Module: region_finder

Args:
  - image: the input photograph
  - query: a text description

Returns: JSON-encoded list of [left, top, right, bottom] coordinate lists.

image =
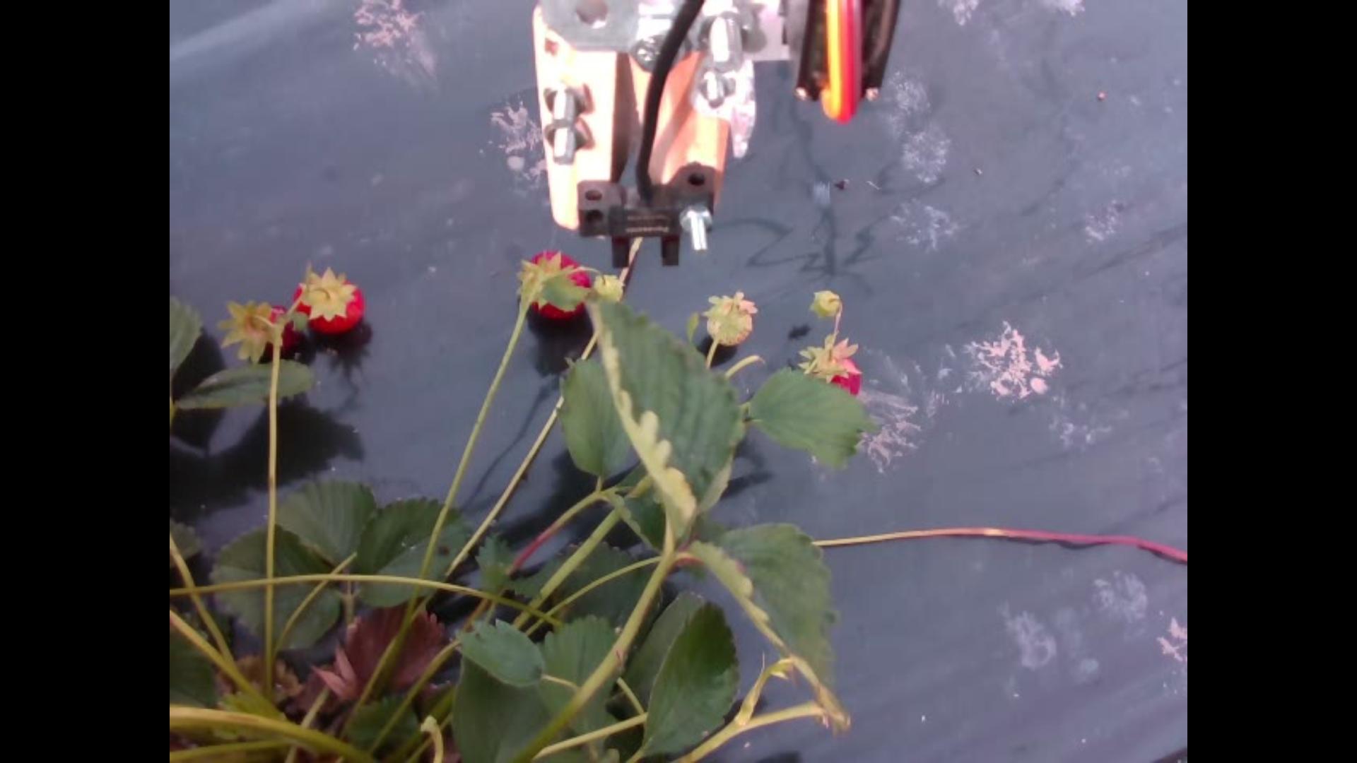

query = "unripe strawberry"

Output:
[[706, 287, 756, 350]]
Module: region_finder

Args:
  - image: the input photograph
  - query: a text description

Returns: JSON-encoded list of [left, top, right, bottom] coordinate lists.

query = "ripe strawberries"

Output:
[[299, 271, 368, 332], [518, 256, 589, 317], [237, 301, 298, 363], [801, 344, 864, 400]]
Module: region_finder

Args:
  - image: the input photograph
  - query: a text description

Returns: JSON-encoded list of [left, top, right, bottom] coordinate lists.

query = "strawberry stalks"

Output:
[[291, 284, 337, 308], [713, 294, 741, 360], [504, 270, 555, 335], [246, 312, 281, 337], [807, 289, 853, 327], [798, 344, 844, 372]]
